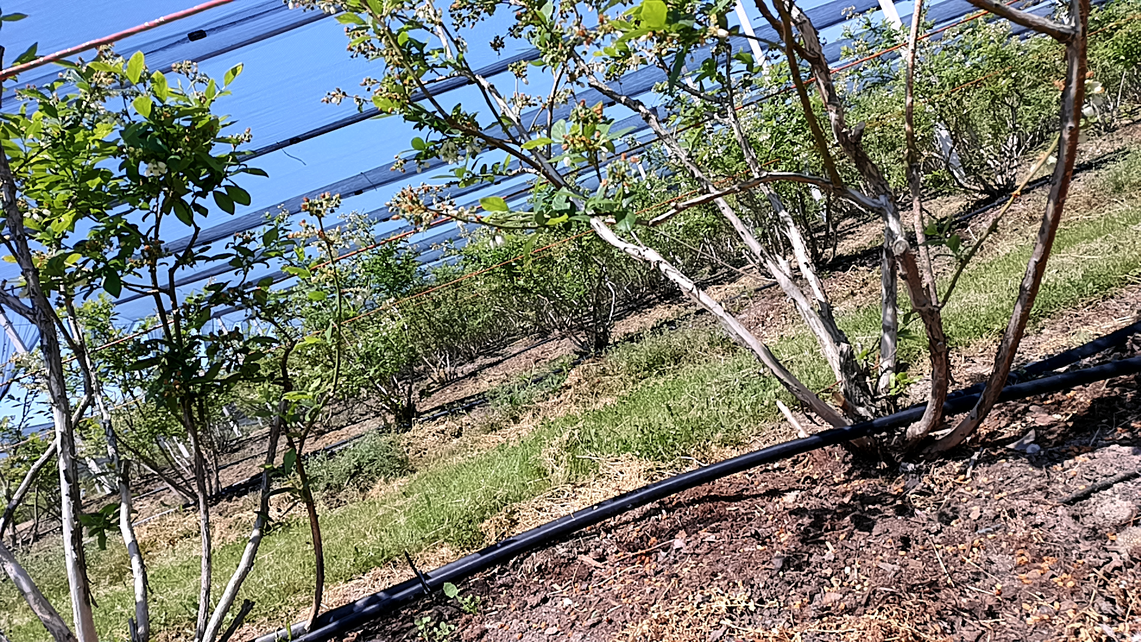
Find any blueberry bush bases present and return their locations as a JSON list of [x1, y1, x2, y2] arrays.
[[558, 315, 627, 365], [0, 531, 313, 642], [760, 276, 1054, 474], [751, 229, 840, 297], [962, 160, 1033, 207], [376, 383, 436, 430]]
